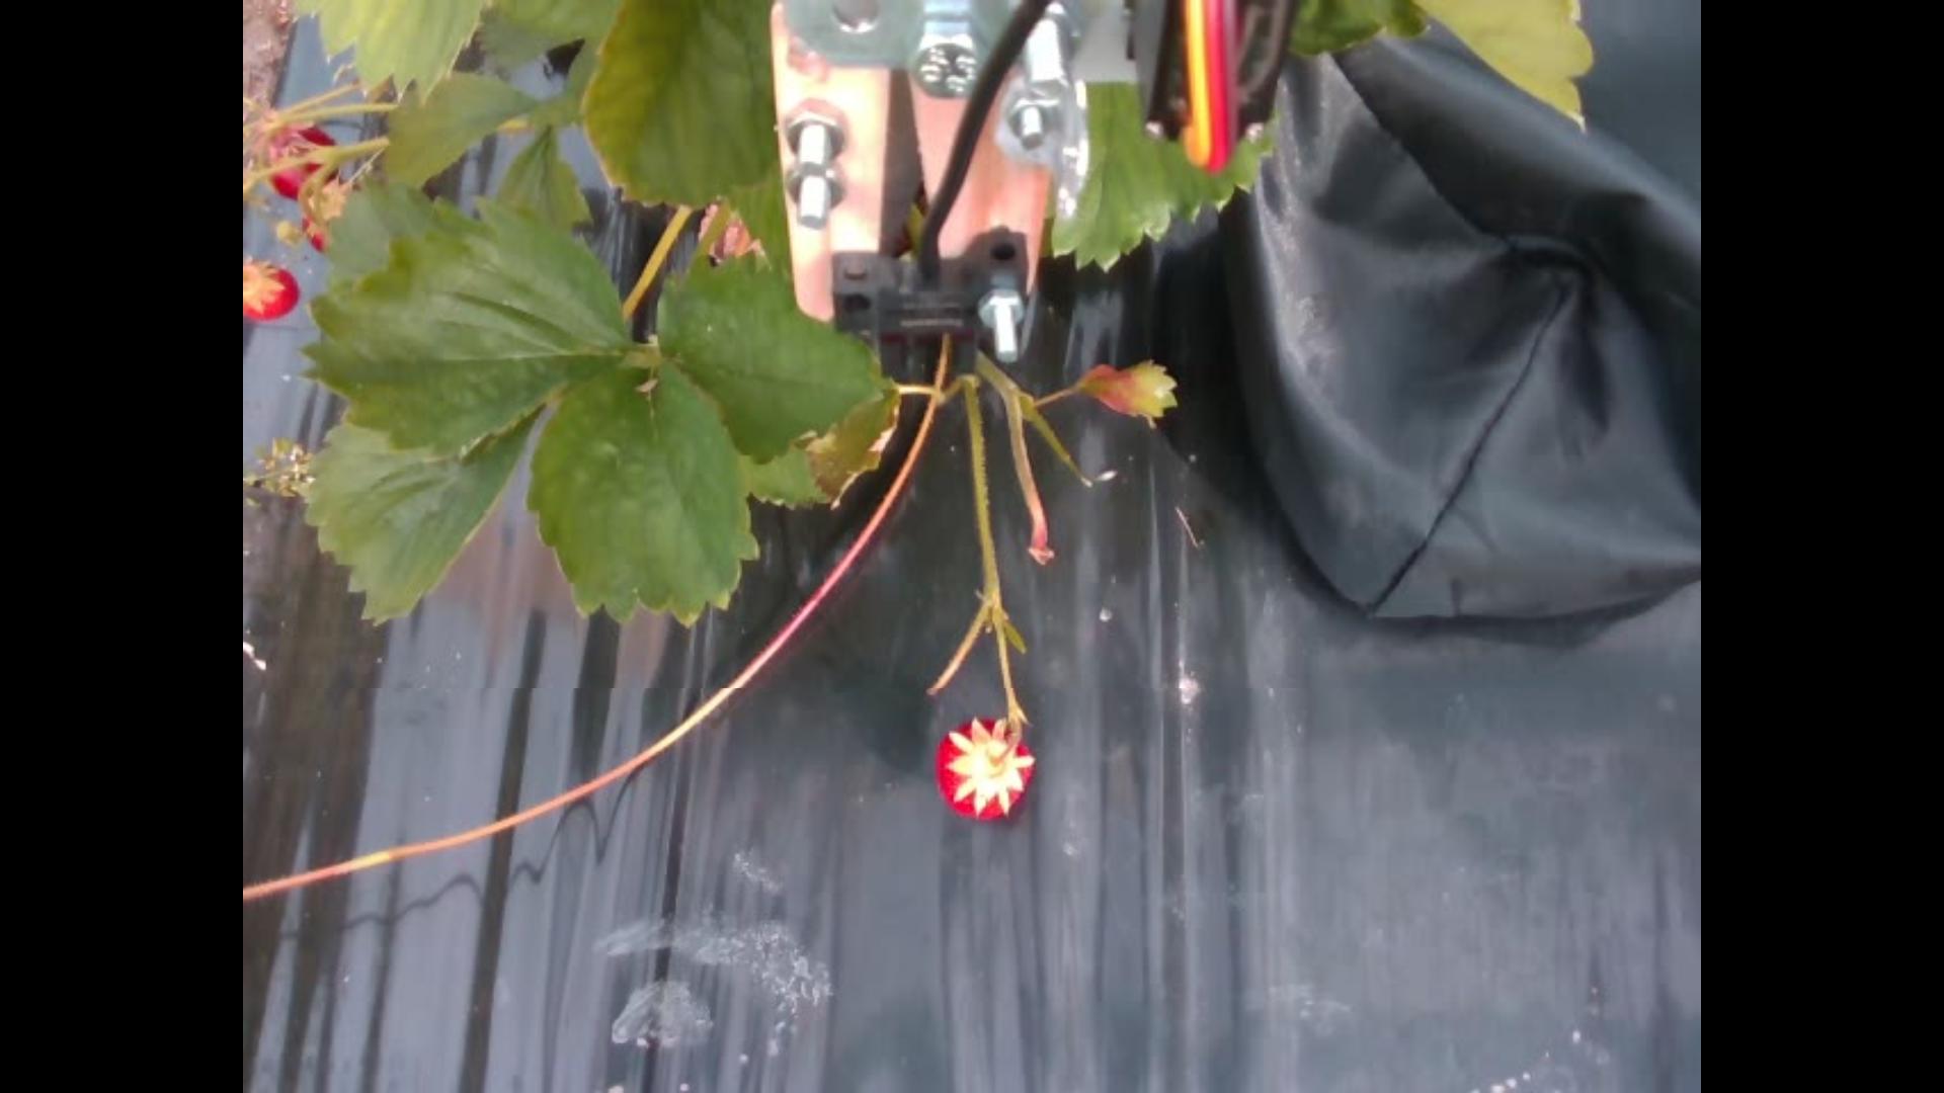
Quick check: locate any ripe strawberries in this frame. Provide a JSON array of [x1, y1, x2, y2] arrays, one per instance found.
[[259, 114, 336, 197], [291, 185, 376, 255], [924, 707, 1043, 823], [237, 253, 314, 321]]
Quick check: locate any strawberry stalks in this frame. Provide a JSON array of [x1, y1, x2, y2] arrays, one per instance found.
[[965, 569, 1036, 743], [293, 95, 357, 130]]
